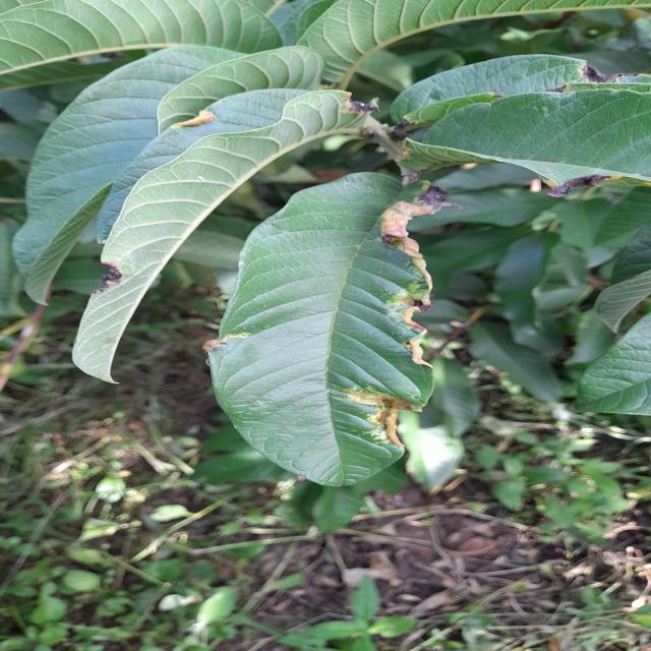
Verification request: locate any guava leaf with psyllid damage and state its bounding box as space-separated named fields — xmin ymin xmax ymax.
xmin=183 ymin=159 xmax=450 ymax=520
